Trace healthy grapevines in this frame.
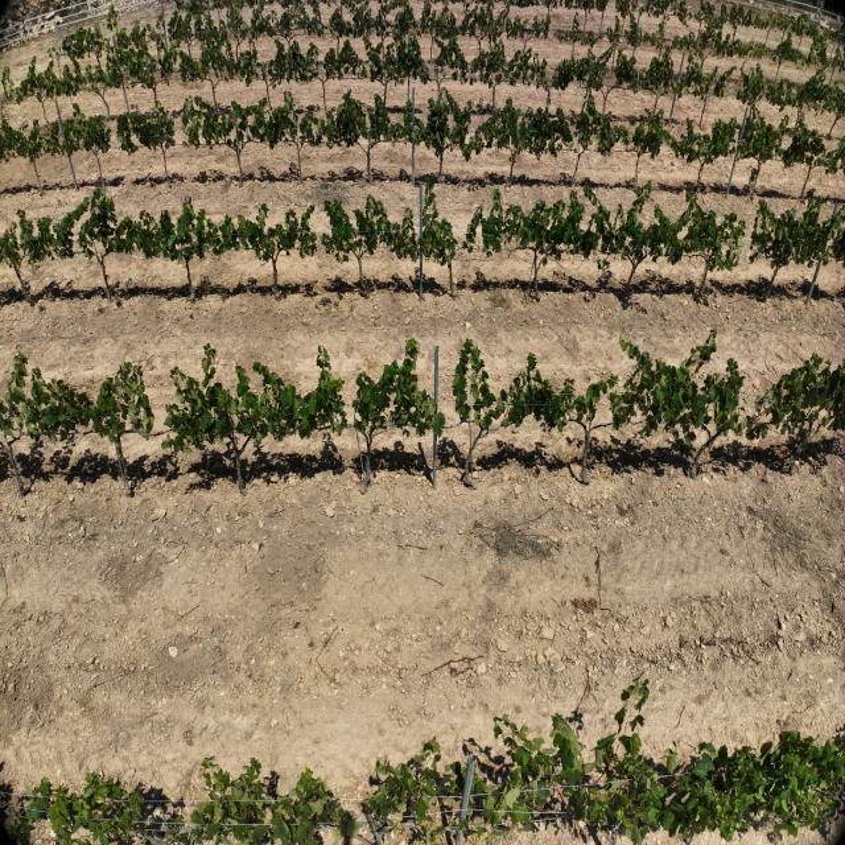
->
[0,342,71,514]
[606,325,779,491]
[289,342,432,508]
[522,354,651,495]
[165,339,293,504]
[419,345,539,500]
[772,337,845,479]
[67,347,166,509]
